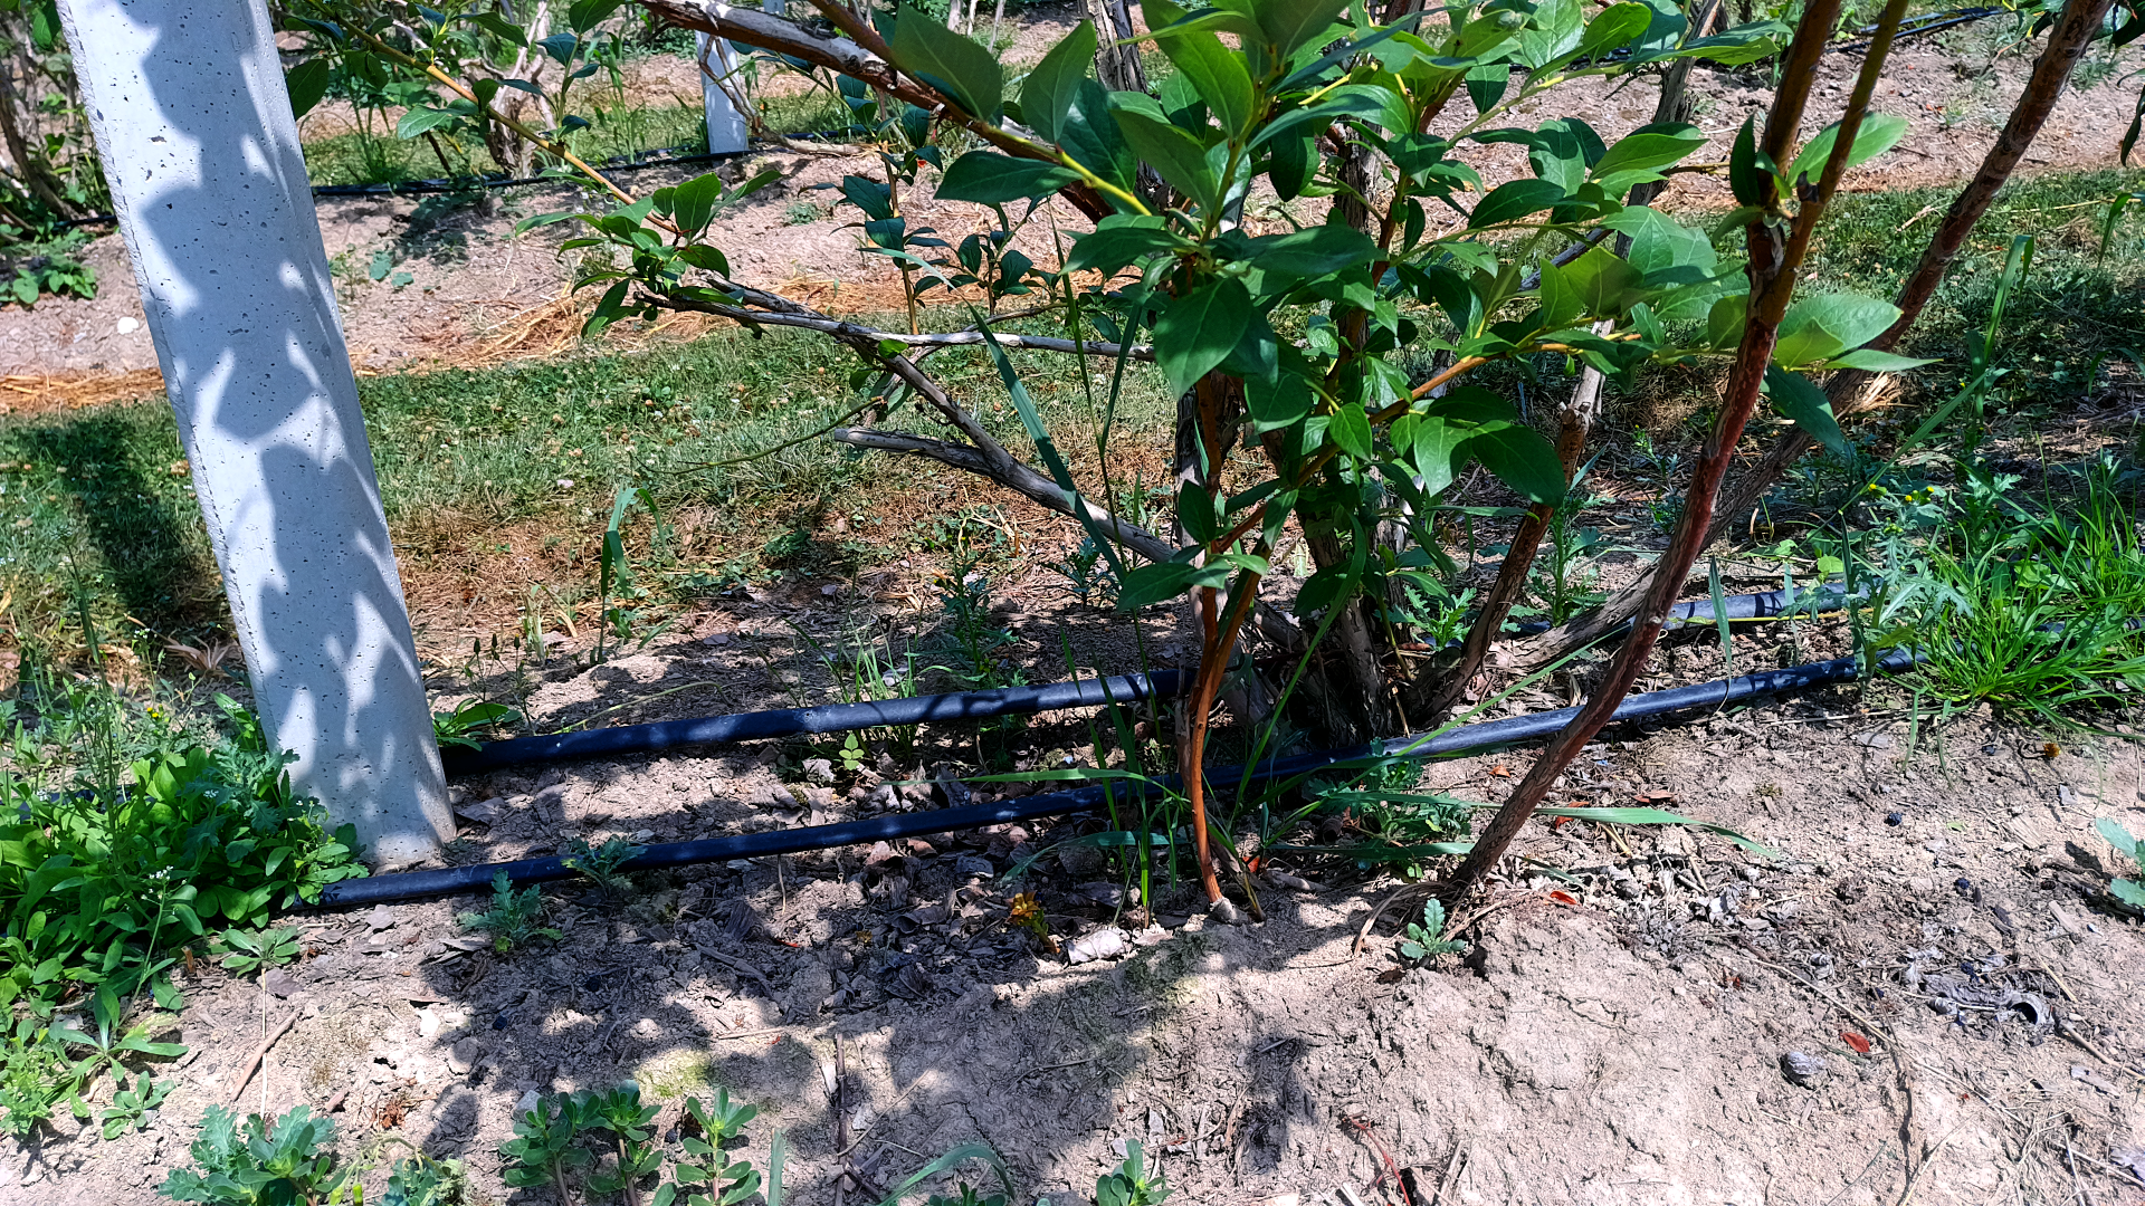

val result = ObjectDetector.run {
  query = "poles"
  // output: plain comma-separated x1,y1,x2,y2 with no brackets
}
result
147,0,479,938
690,22,754,162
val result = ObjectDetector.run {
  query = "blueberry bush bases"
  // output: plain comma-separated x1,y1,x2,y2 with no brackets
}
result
989,418,1735,992
437,111,584,222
